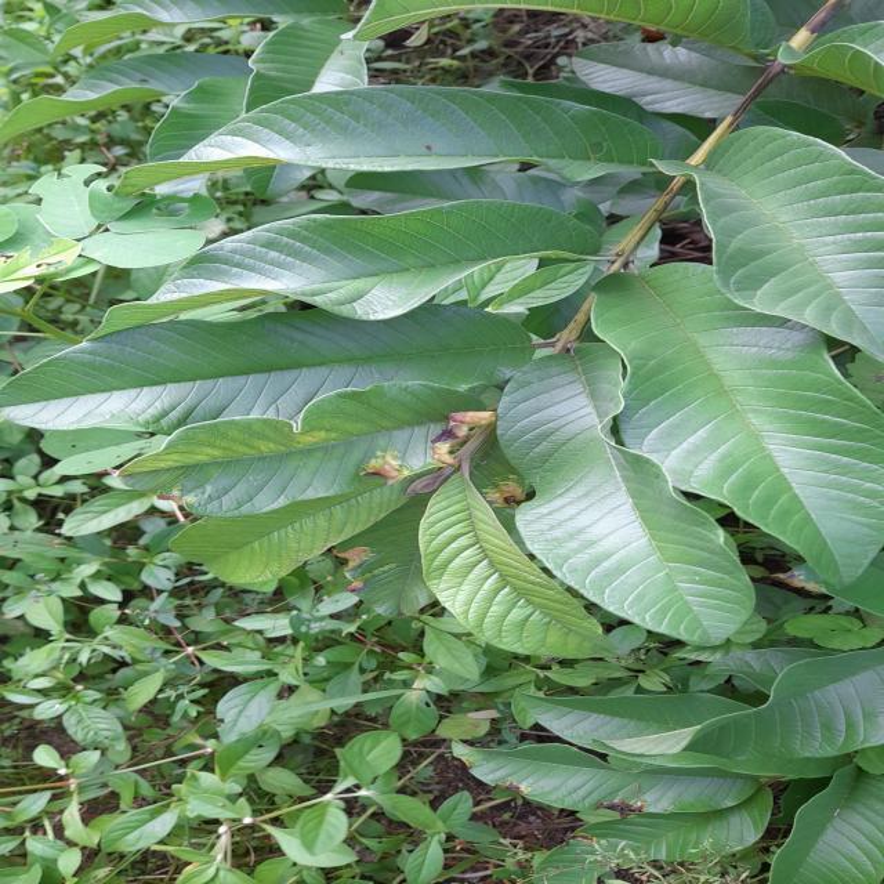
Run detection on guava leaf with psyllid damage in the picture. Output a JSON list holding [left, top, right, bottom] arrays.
[[99, 363, 525, 528]]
